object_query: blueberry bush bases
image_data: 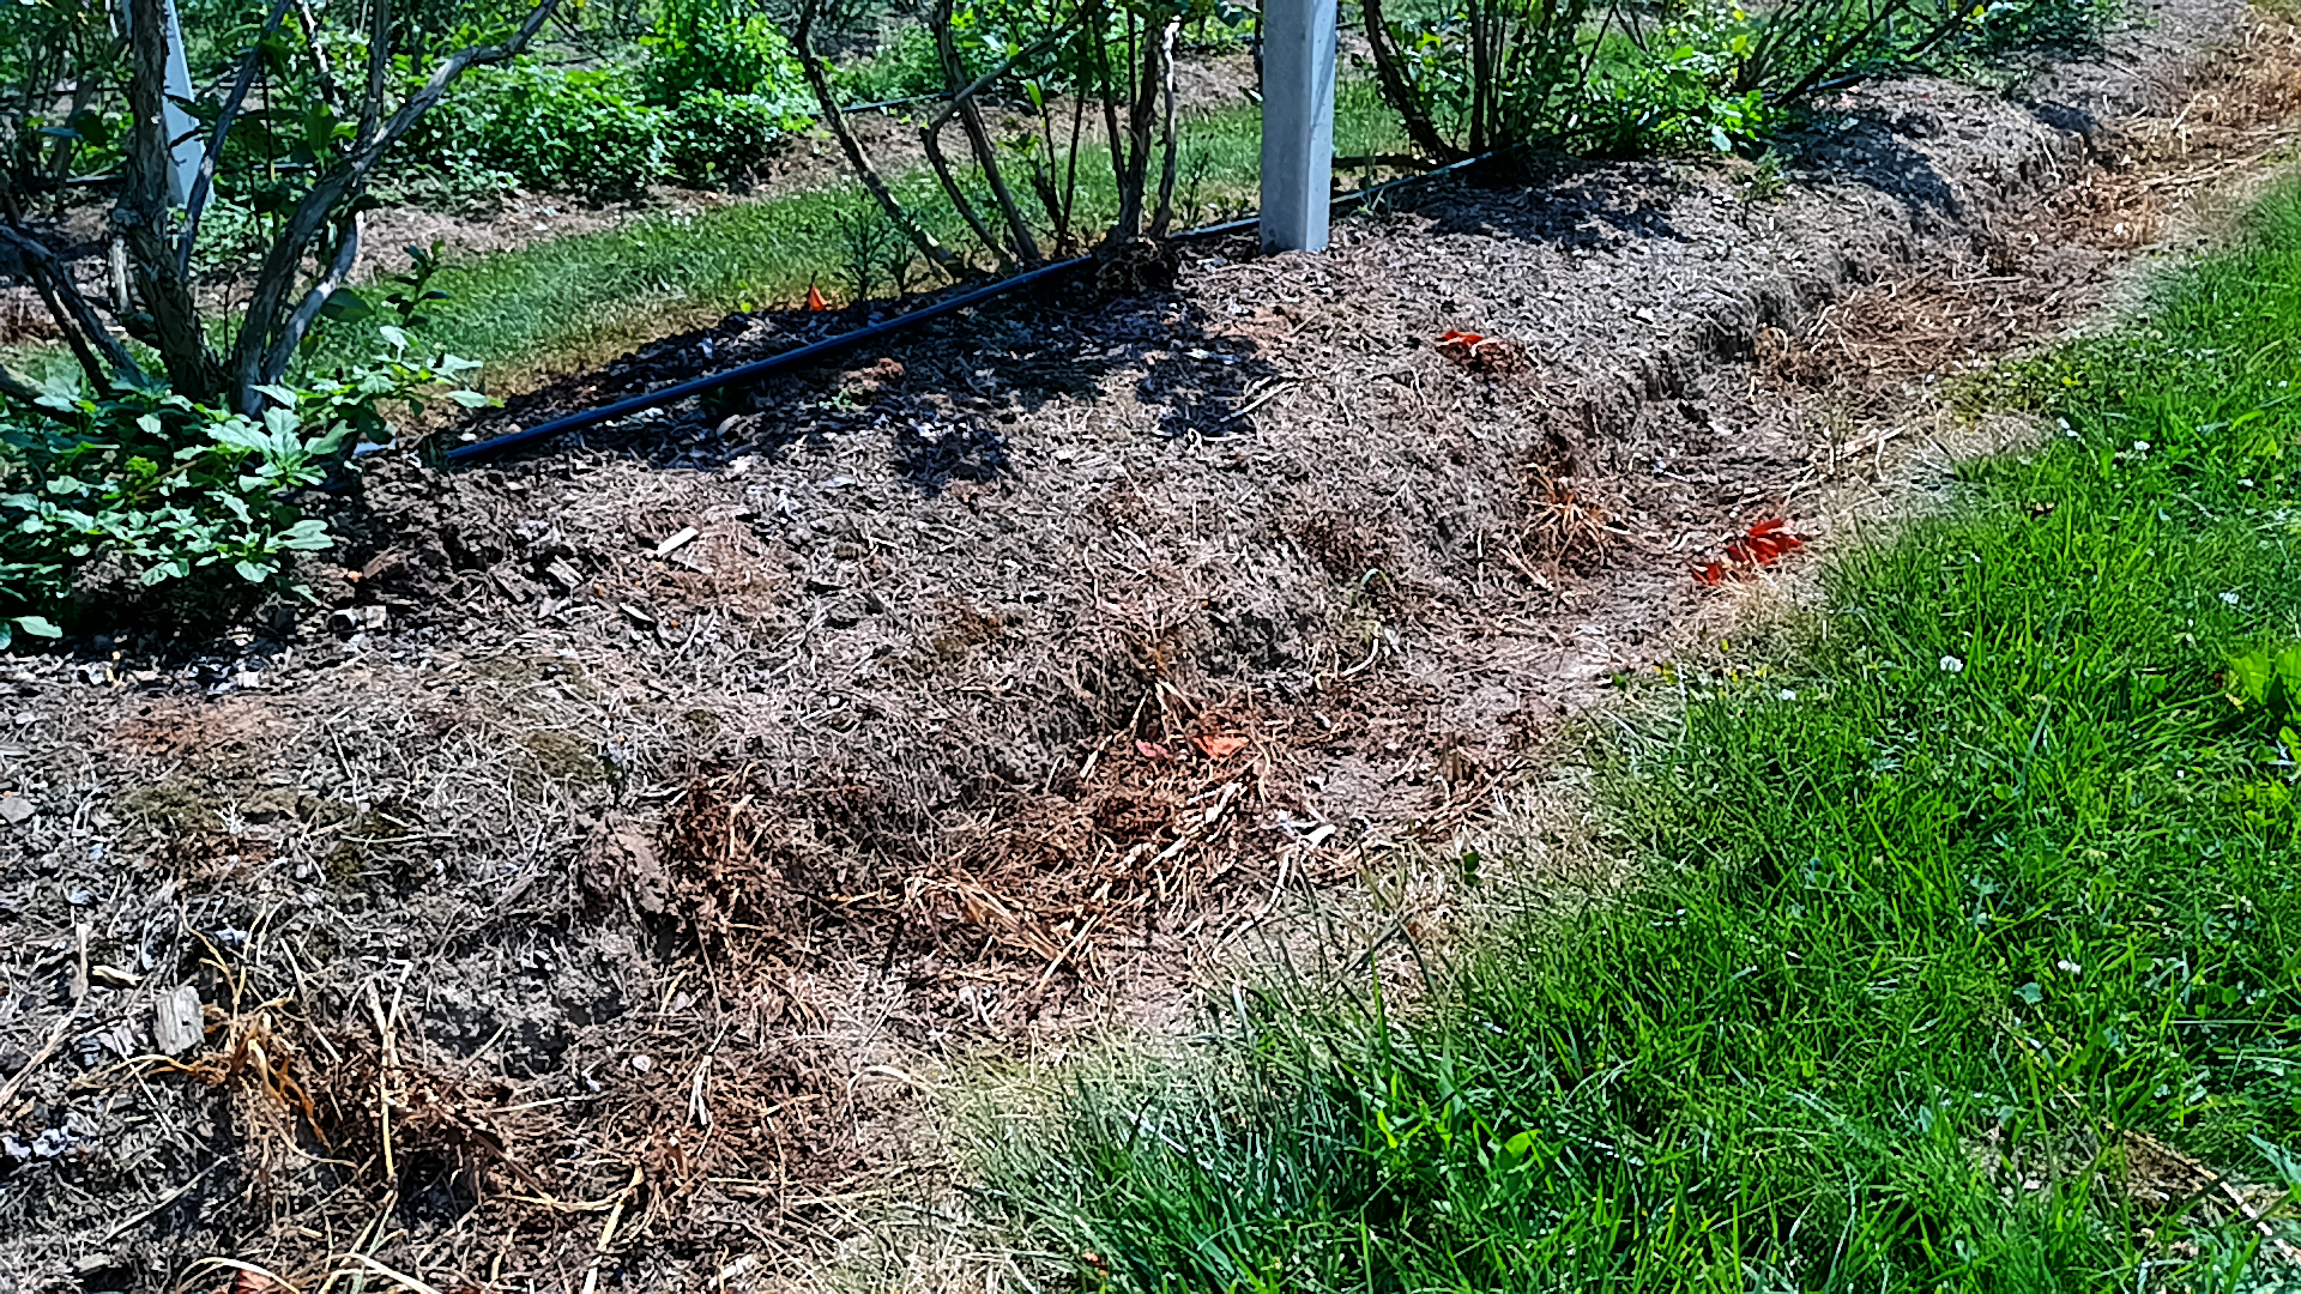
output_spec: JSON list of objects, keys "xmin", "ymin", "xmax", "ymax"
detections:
[
  {"xmin": 1729, "ymin": 6, "xmax": 1898, "ymax": 126},
  {"xmin": 783, "ymin": 3, "xmax": 1216, "ymax": 344},
  {"xmin": 1356, "ymin": 3, "xmax": 1626, "ymax": 205},
  {"xmin": 11, "ymin": 179, "xmax": 395, "ymax": 478}
]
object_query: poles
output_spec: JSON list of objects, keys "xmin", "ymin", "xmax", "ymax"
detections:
[
  {"xmin": 156, "ymin": 12, "xmax": 213, "ymax": 176},
  {"xmin": 1252, "ymin": 6, "xmax": 1343, "ymax": 282}
]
